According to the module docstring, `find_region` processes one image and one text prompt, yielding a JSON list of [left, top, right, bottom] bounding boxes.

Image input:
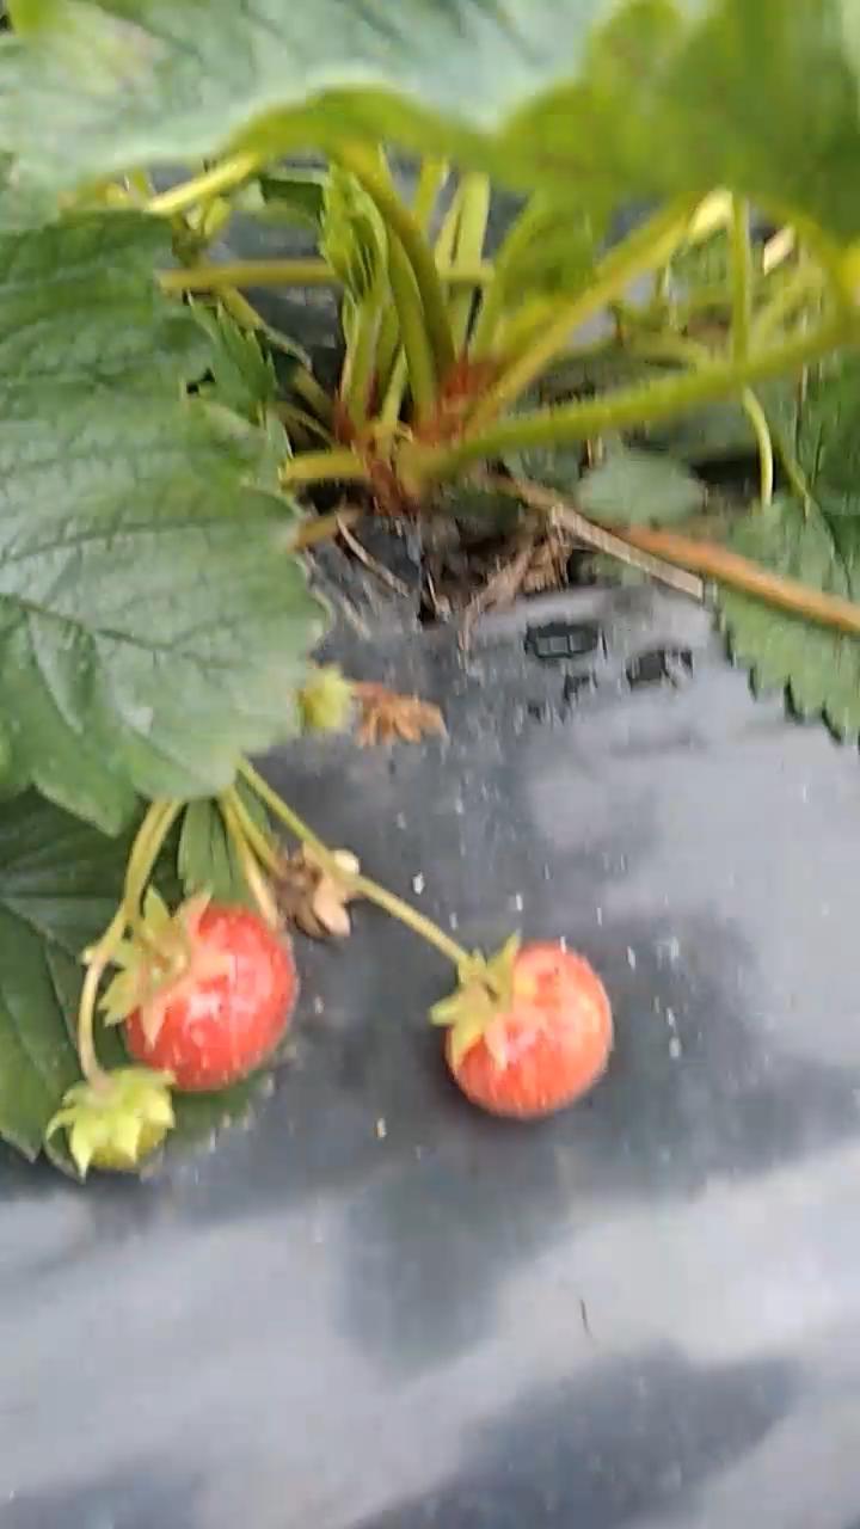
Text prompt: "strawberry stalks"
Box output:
[[107, 853, 219, 998], [67, 945, 140, 1127], [349, 861, 496, 1002]]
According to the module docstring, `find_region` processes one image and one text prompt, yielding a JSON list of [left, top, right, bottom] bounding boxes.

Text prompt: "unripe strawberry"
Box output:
[[55, 1070, 179, 1183]]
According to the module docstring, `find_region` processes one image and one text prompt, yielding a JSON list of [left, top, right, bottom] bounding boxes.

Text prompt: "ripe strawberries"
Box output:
[[108, 888, 303, 1103], [435, 941, 626, 1127]]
